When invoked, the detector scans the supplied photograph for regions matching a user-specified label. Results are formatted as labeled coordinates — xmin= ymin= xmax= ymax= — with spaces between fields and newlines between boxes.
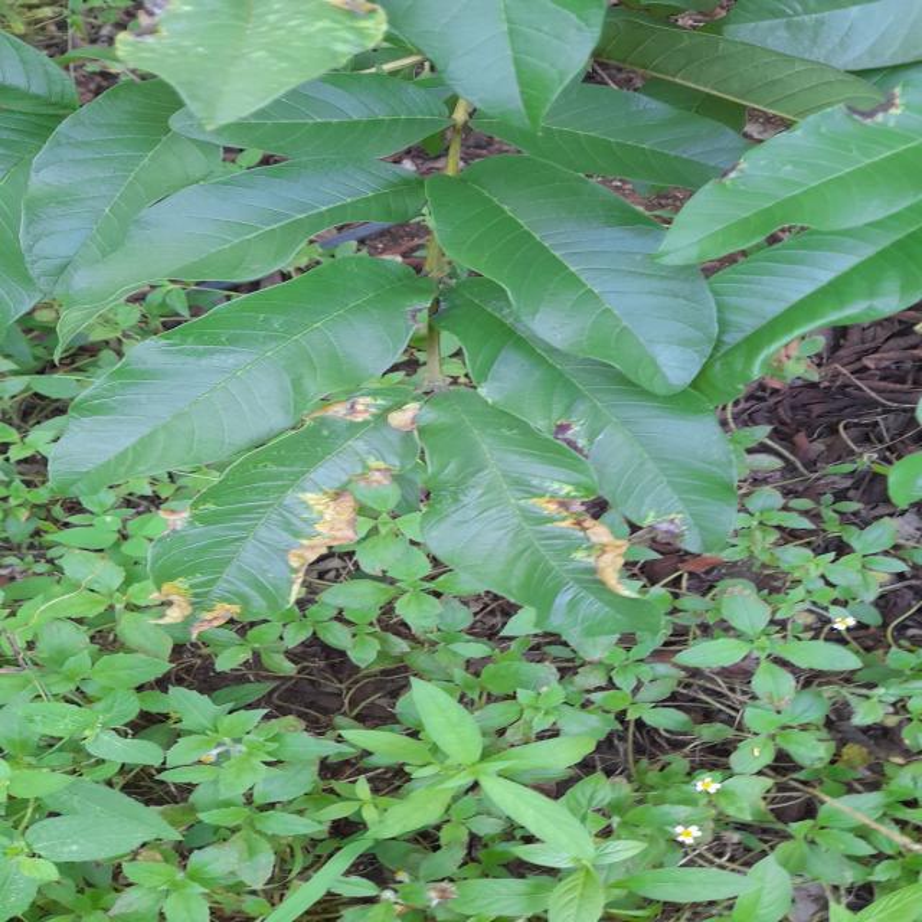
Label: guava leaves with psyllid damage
xmin=120 ymin=367 xmax=449 ymax=682
xmin=393 ymin=376 xmax=681 ymax=669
